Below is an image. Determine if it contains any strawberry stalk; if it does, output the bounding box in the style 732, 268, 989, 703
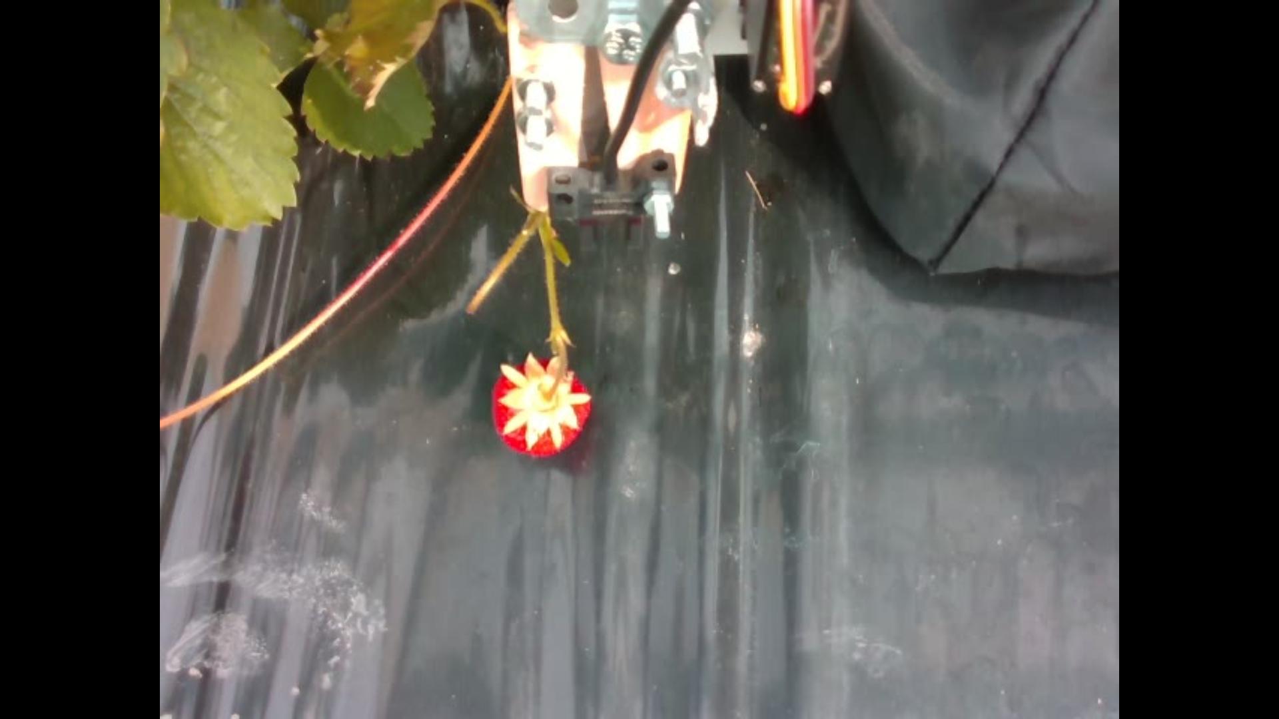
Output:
538, 245, 577, 402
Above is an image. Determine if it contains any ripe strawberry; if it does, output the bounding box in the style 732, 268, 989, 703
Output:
487, 352, 601, 464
